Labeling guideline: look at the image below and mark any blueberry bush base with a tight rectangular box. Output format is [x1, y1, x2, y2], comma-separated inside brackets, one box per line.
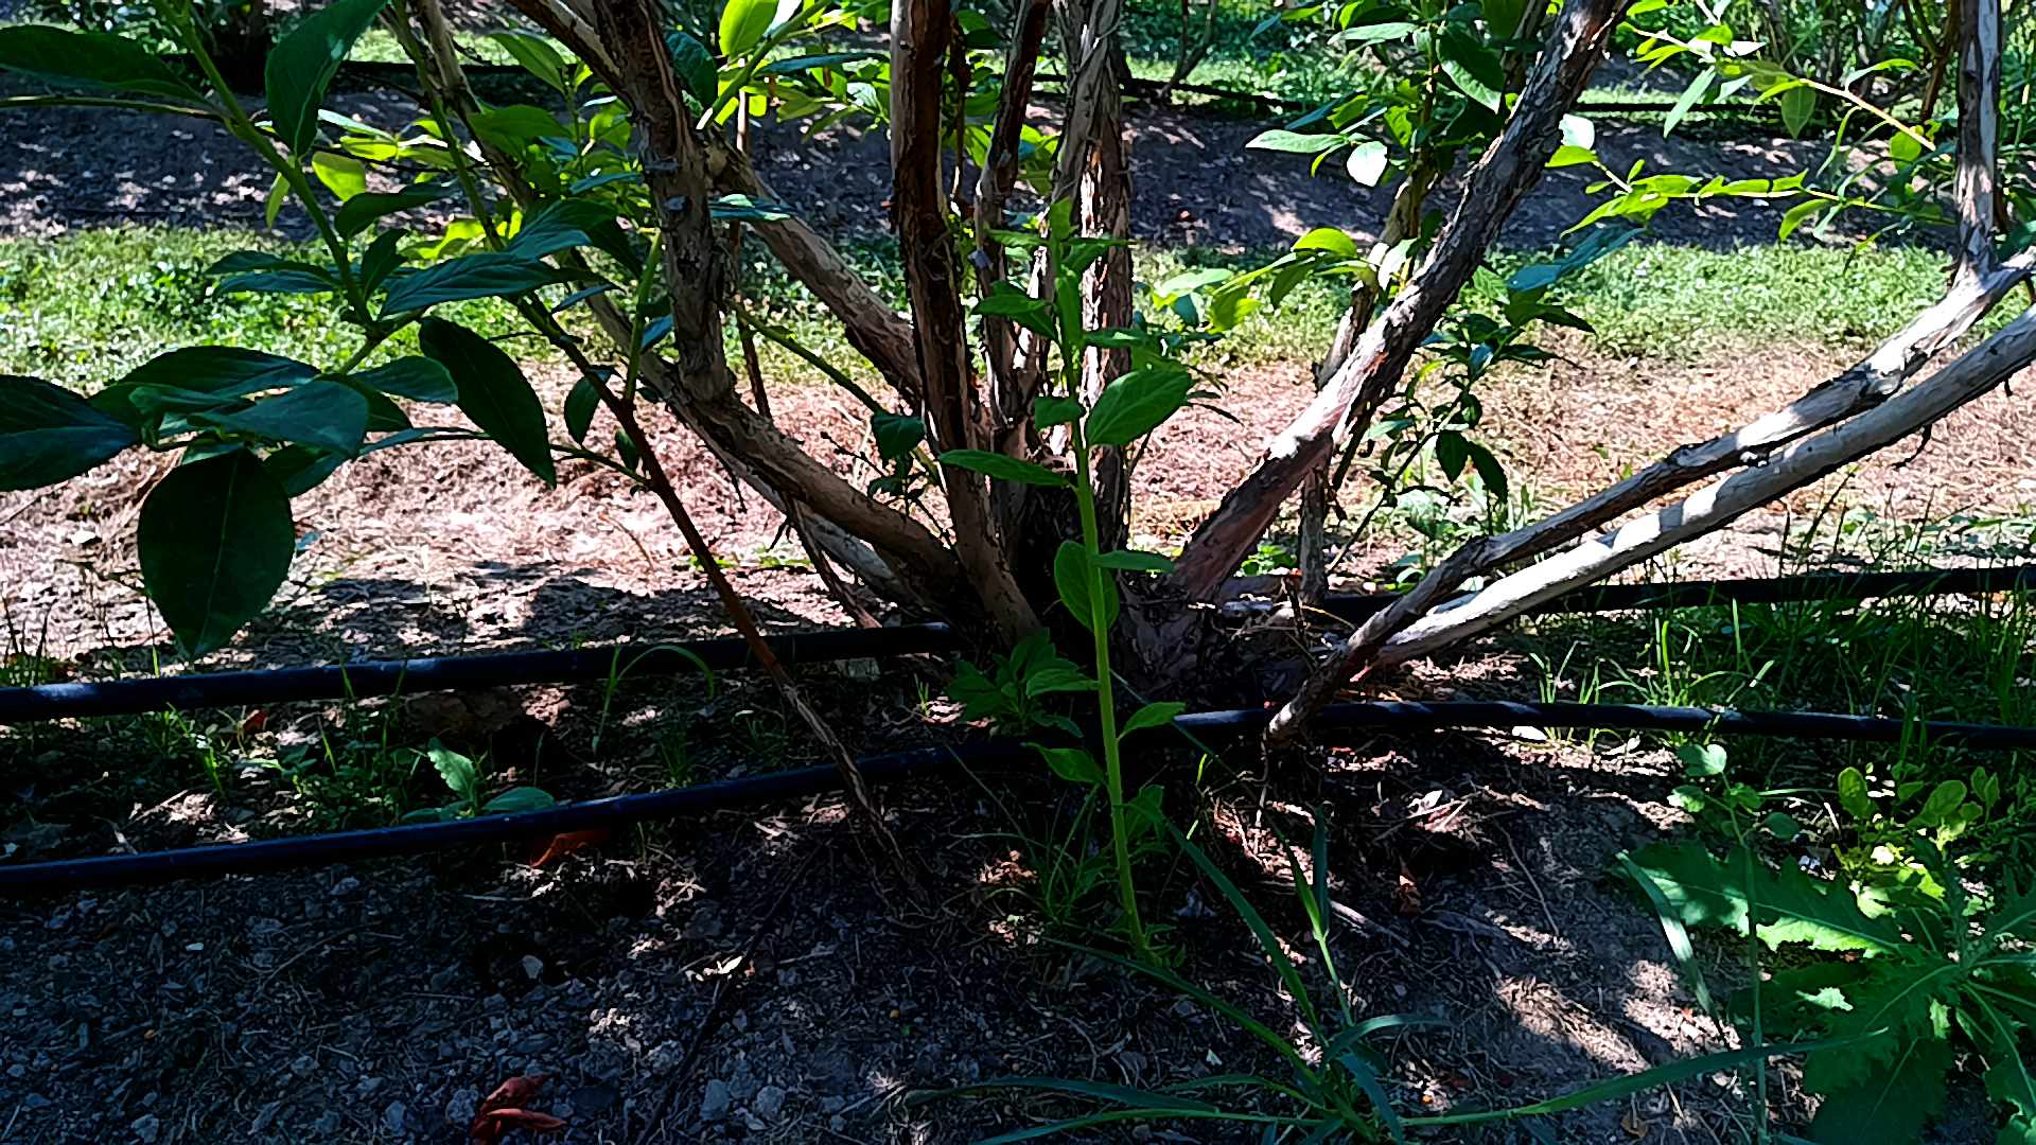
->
[678, 306, 1553, 890]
